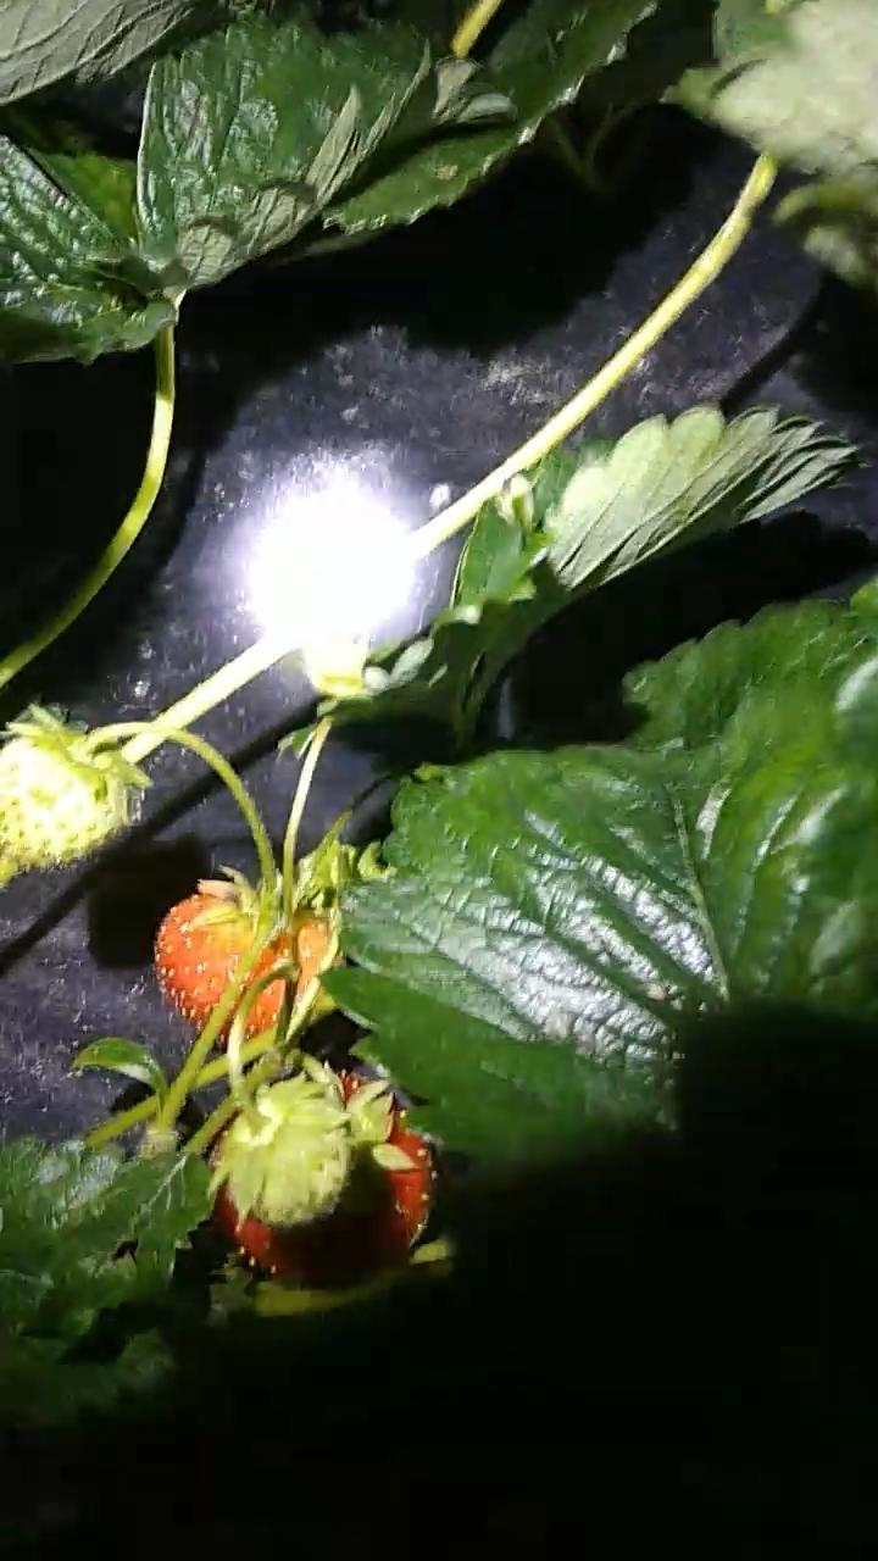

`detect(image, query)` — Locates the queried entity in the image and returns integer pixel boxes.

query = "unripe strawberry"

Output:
[0,704,137,896]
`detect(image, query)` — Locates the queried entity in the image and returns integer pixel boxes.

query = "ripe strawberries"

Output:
[232,1079,439,1284]
[148,880,337,1032]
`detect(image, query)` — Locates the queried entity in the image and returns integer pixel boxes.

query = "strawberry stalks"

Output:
[243,698,339,937]
[217,976,294,1182]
